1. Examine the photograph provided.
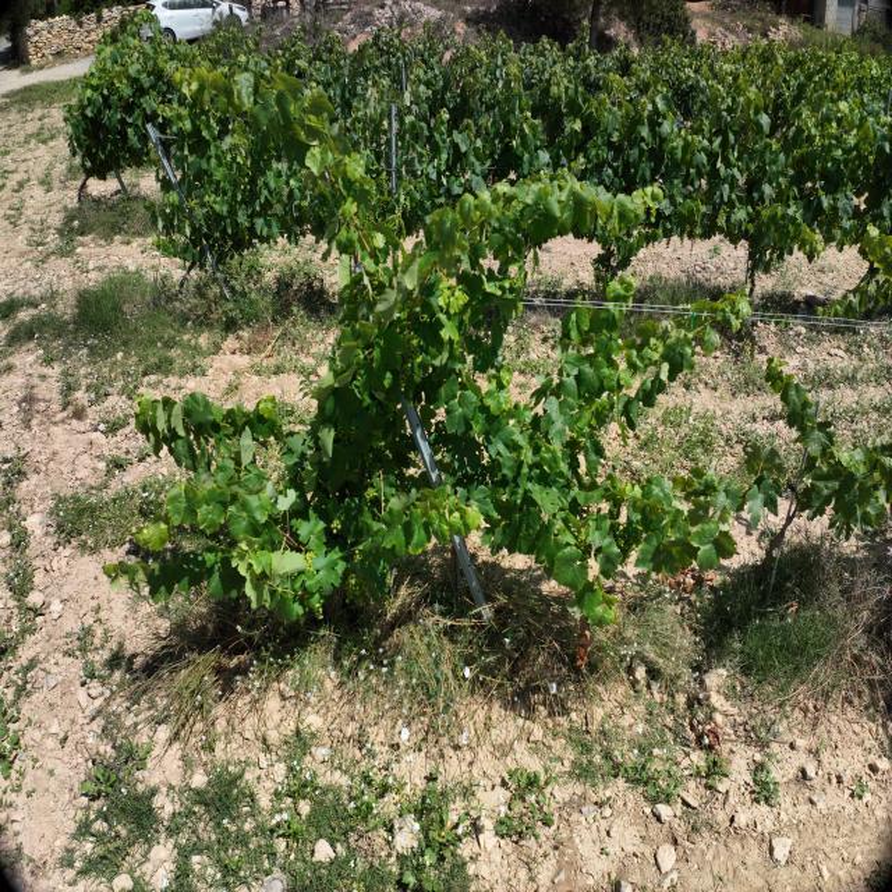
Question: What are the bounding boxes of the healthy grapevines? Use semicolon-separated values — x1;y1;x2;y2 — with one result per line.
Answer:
686;364;892;629
105;167;683;686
